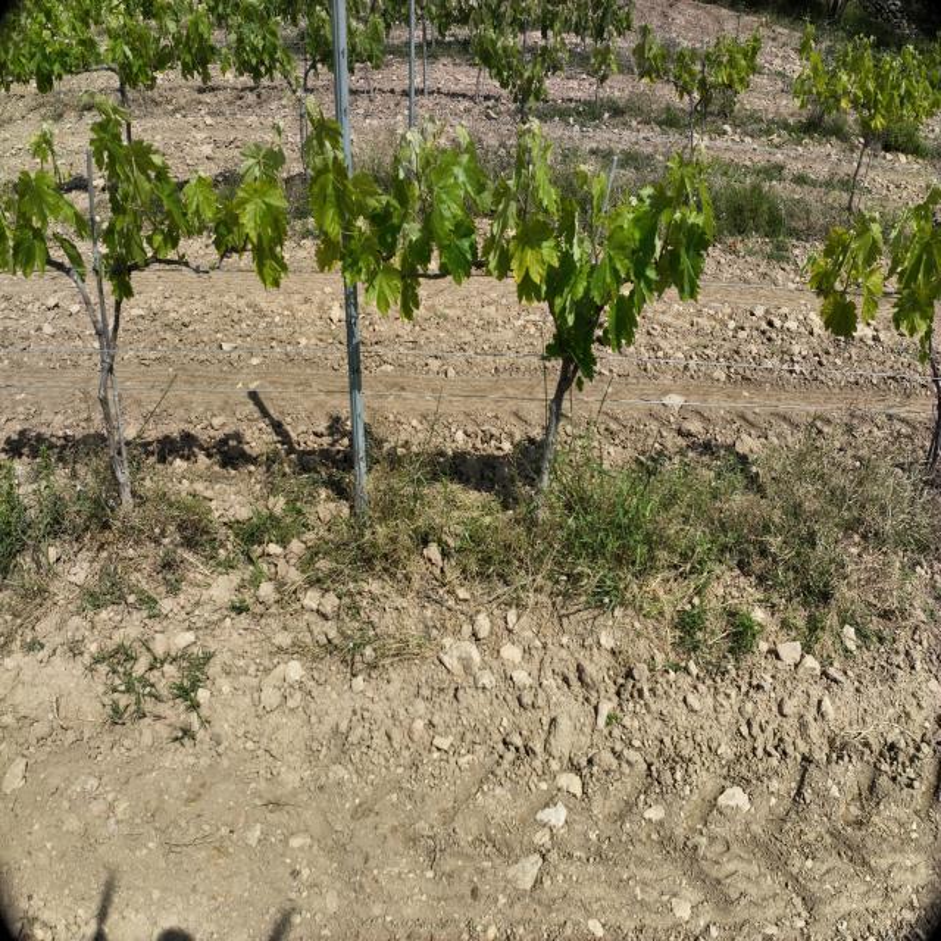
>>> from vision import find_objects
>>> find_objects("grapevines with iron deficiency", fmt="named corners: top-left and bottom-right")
top-left (295, 76), bottom-right (723, 530)
top-left (797, 173), bottom-right (941, 501)
top-left (0, 88), bottom-right (297, 525)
